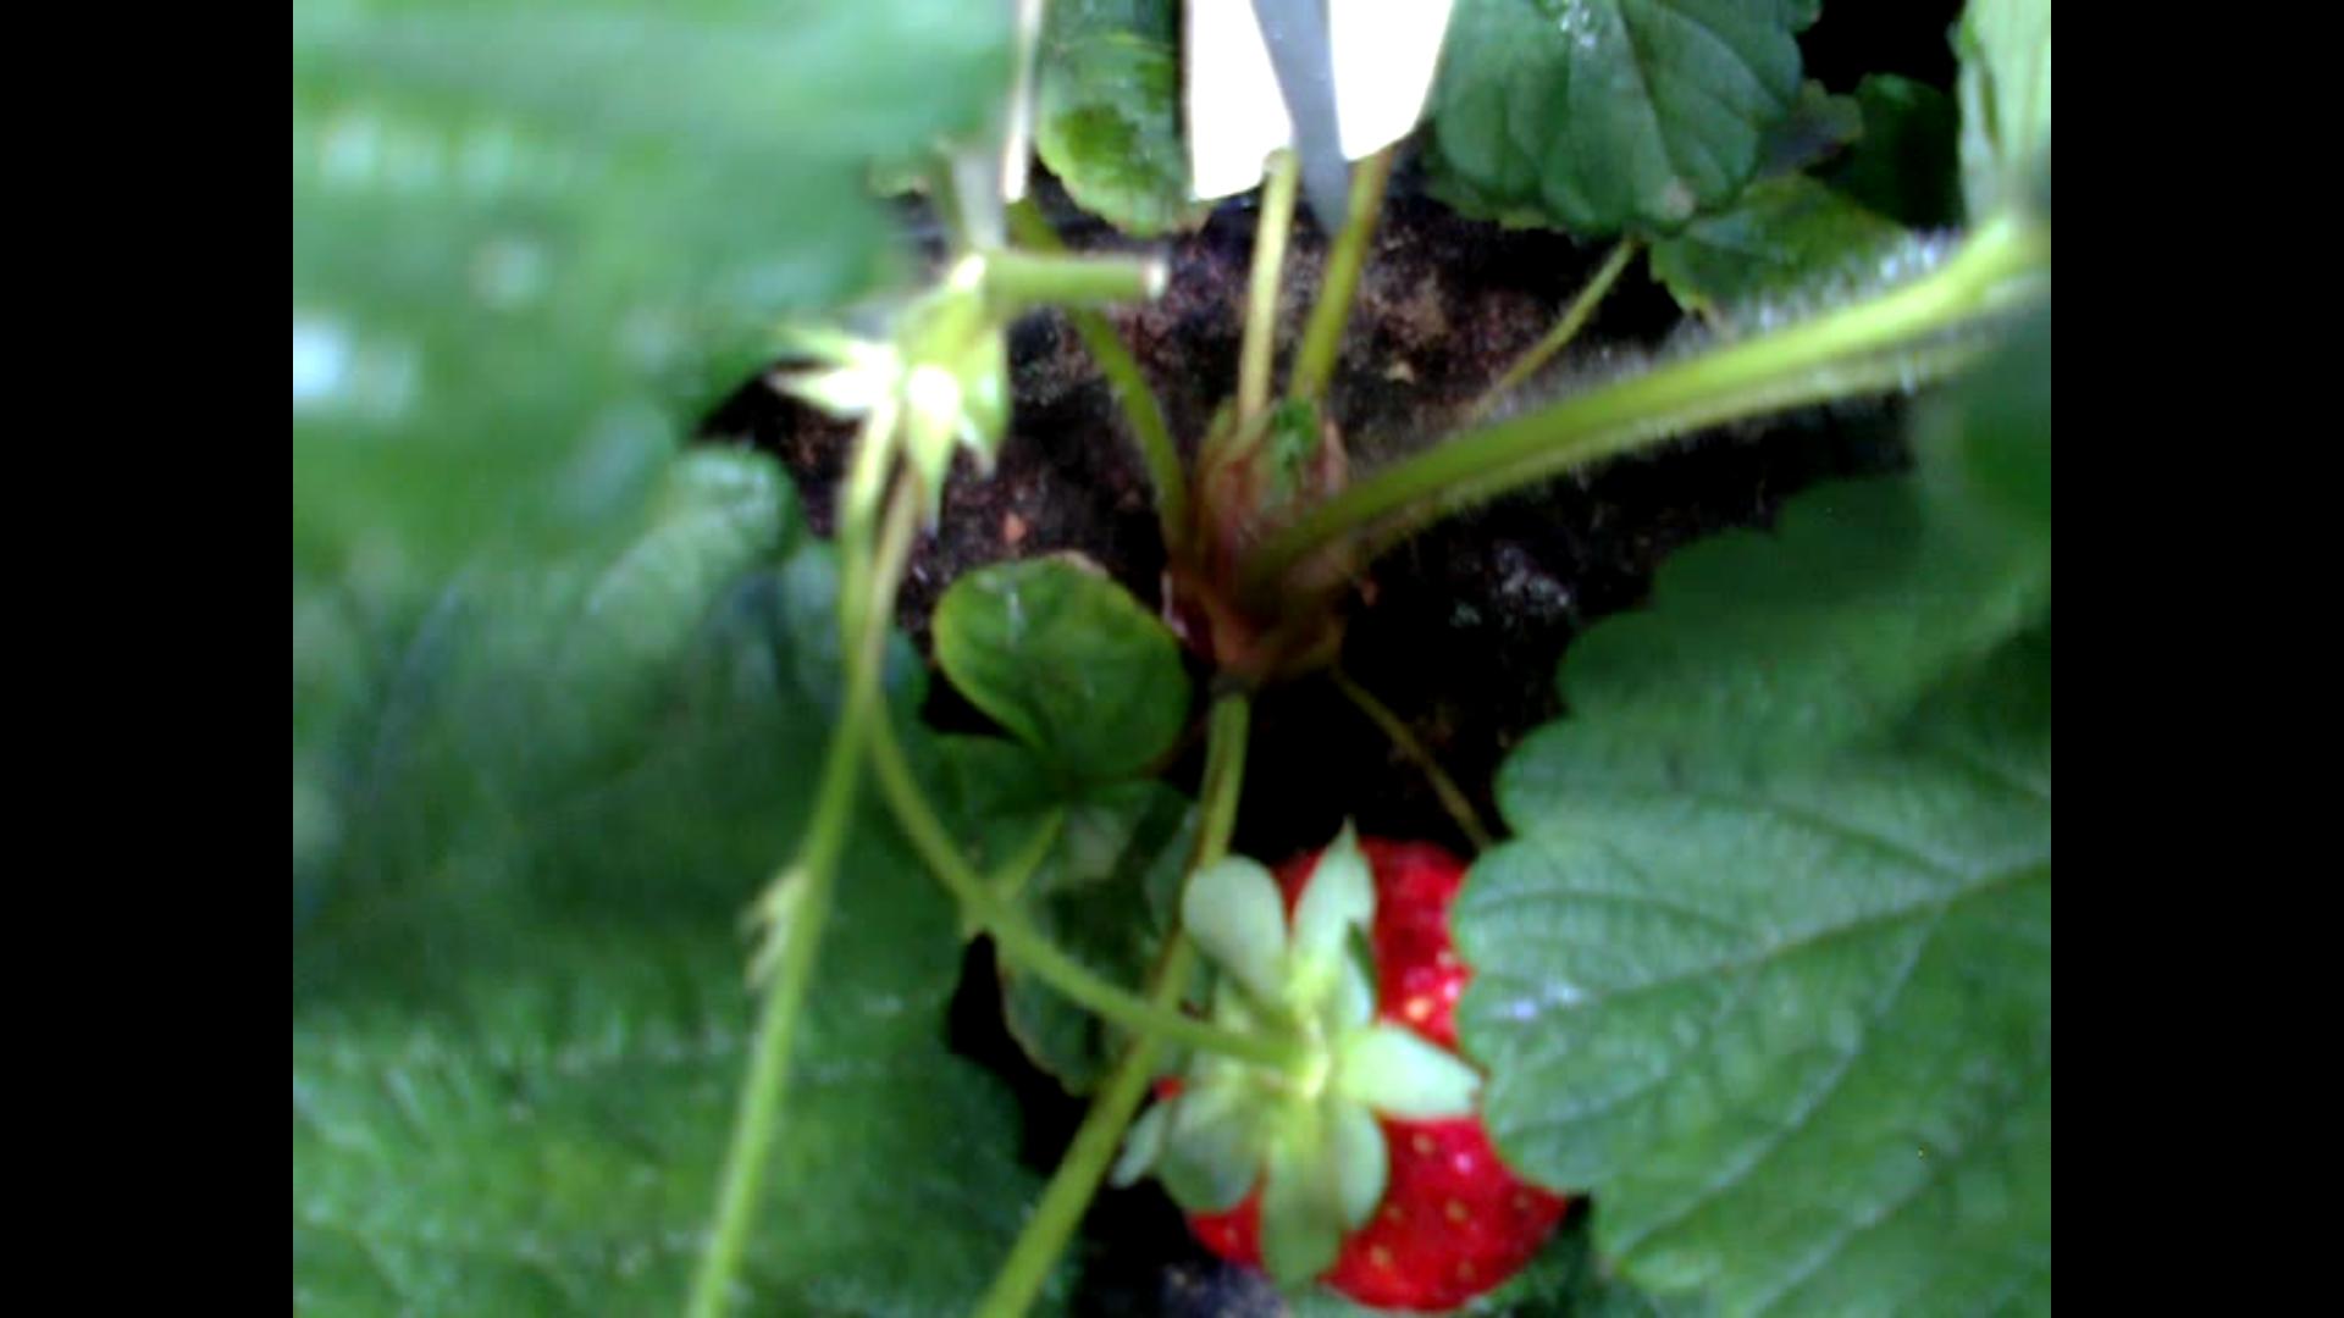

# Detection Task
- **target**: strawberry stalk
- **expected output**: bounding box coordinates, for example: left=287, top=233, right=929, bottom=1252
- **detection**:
left=875, top=719, right=1416, bottom=1154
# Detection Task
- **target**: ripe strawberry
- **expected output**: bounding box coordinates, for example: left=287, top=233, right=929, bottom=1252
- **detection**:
left=1155, top=804, right=1612, bottom=1297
